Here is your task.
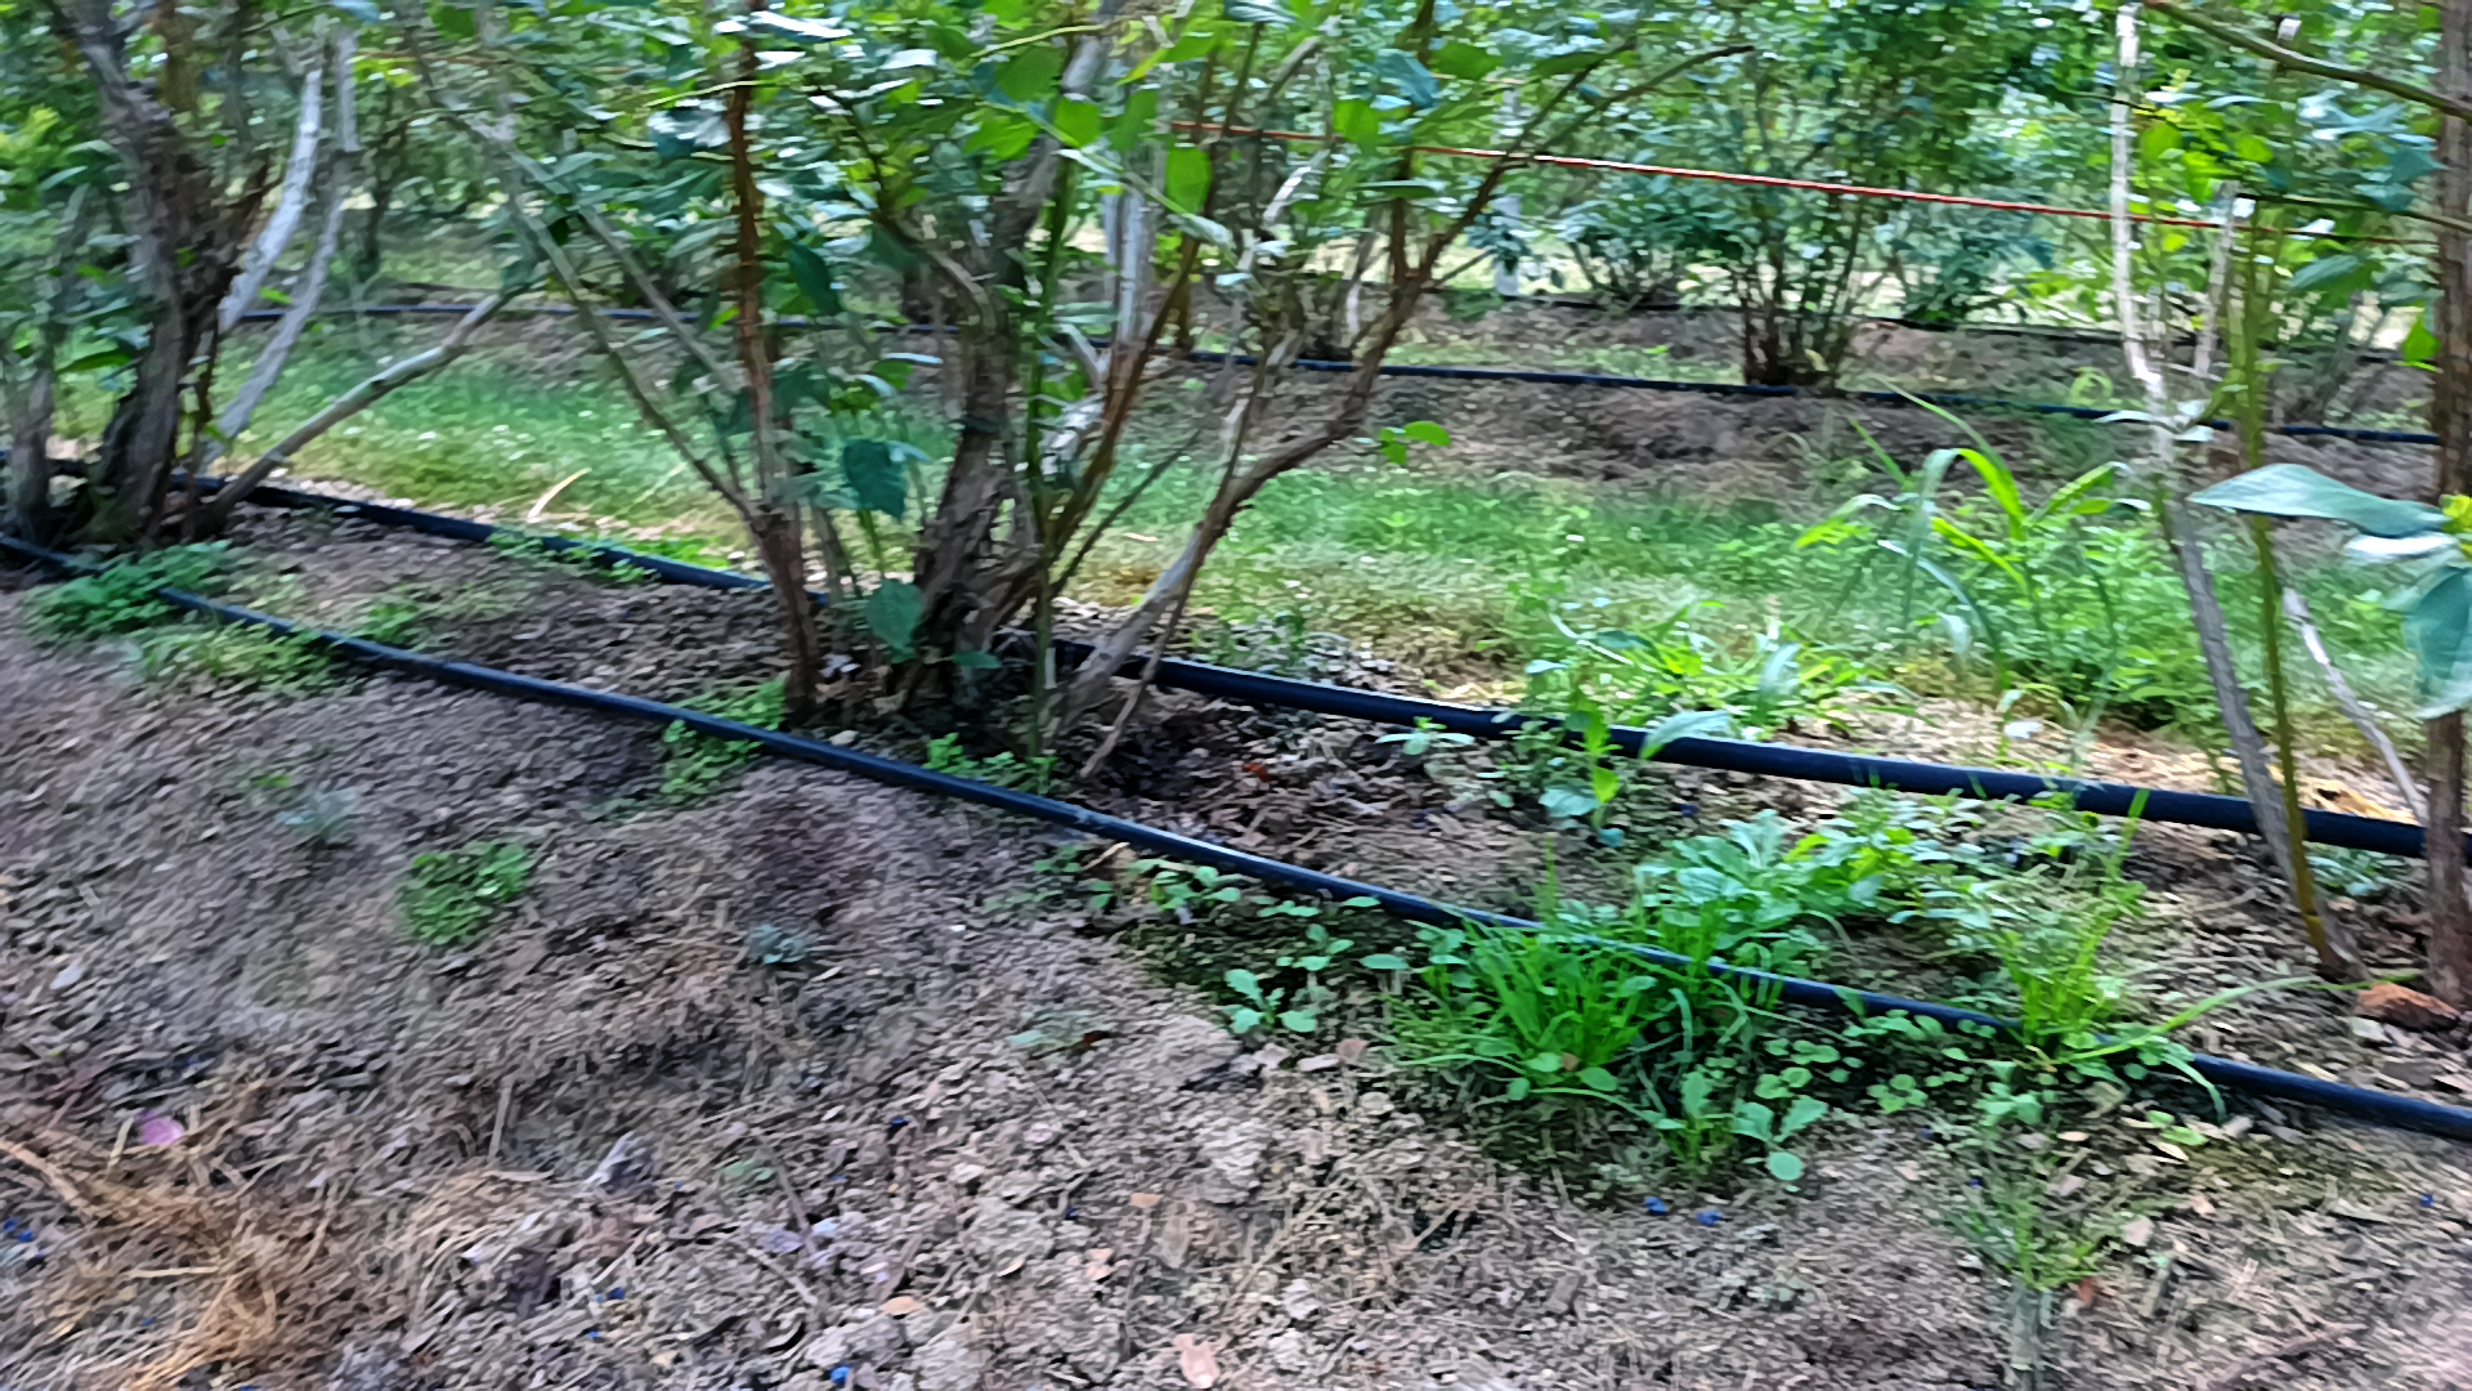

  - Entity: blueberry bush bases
[1,334,315,612]
[1720,330,1863,413]
[2193,769,2471,1055]
[673,469,1221,823]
